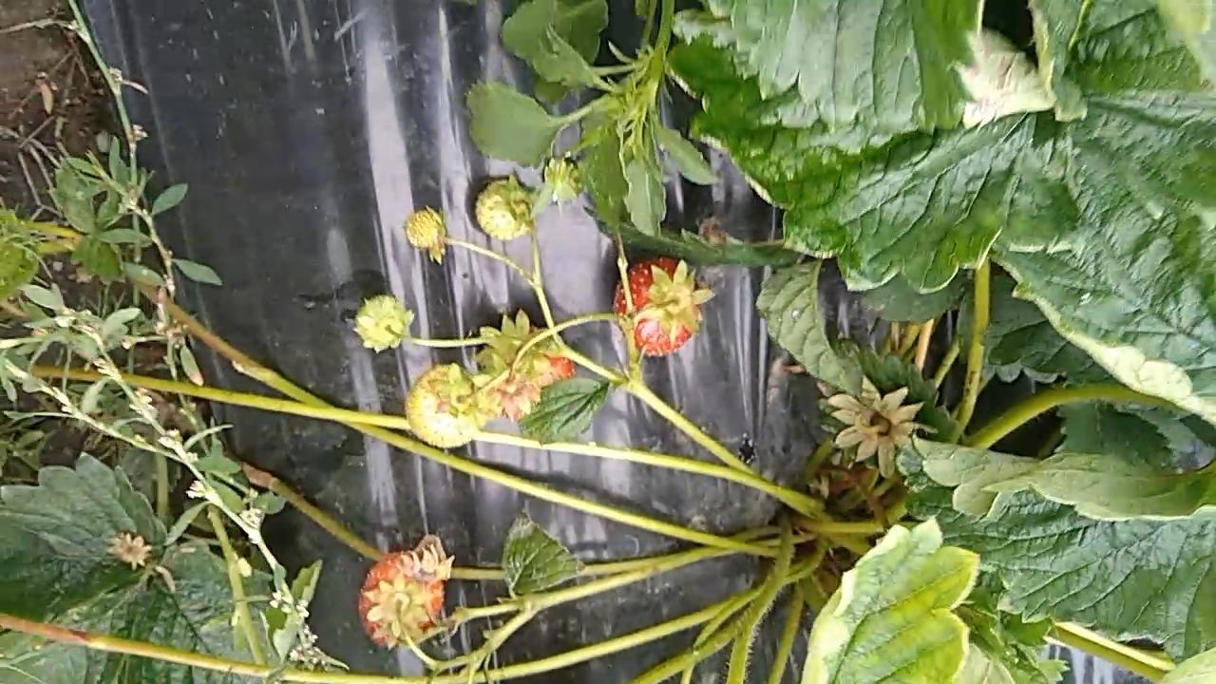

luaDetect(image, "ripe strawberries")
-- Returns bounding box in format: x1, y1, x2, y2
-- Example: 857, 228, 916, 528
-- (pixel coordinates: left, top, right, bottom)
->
477, 323, 579, 427
351, 552, 454, 650
606, 257, 708, 362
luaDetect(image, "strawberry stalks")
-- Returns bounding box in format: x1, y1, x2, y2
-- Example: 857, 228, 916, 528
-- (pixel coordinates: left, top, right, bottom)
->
438, 228, 482, 265
393, 607, 456, 673
381, 314, 443, 351
441, 375, 498, 416
499, 312, 594, 396
608, 290, 687, 341
513, 197, 549, 255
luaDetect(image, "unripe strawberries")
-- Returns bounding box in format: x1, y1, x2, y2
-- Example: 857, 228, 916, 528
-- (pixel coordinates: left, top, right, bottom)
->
399, 207, 452, 259
397, 362, 486, 453
350, 291, 412, 351
473, 179, 539, 241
